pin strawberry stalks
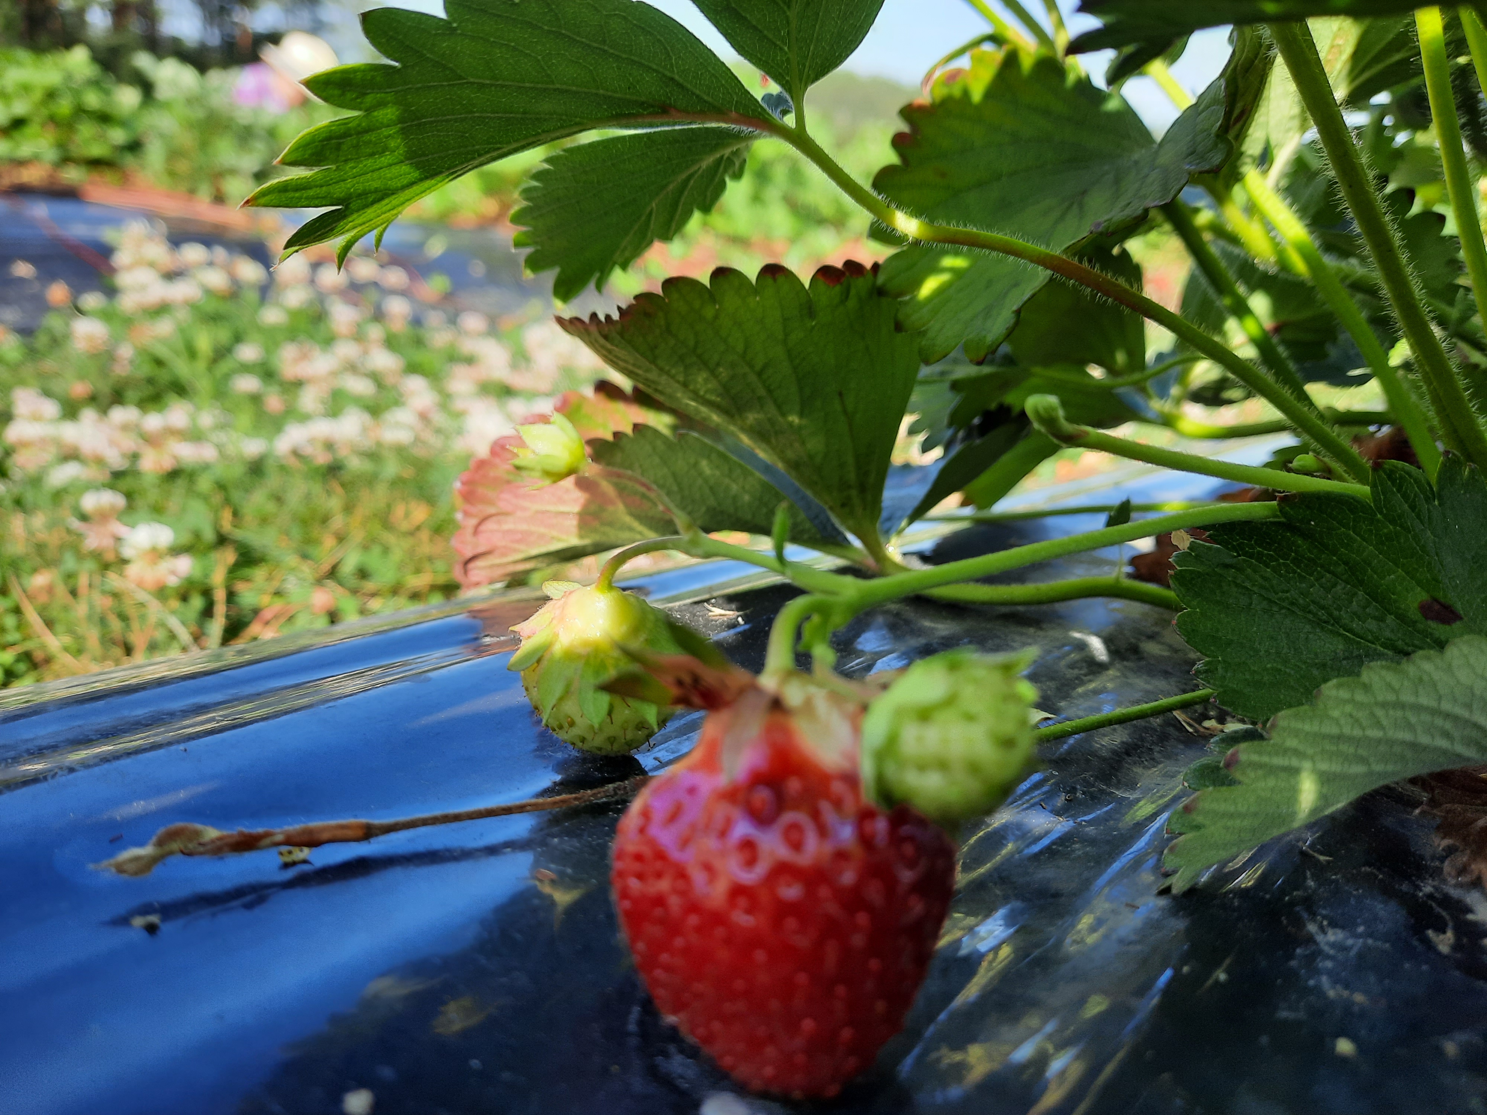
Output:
[585,510,696,627]
[746,585,828,794]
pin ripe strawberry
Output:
[623,756,916,1089]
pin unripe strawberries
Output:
[879,633,1034,816]
[541,605,667,733]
